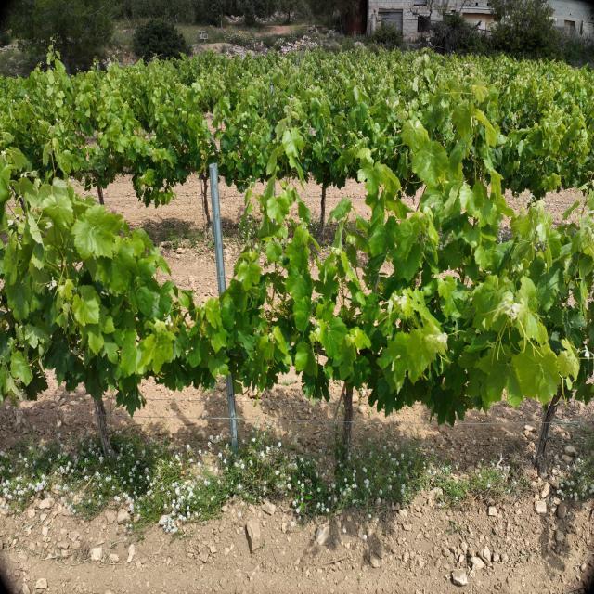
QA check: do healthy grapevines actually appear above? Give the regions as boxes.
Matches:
[437,170,594,500]
[0,174,214,495]
[203,156,452,519]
